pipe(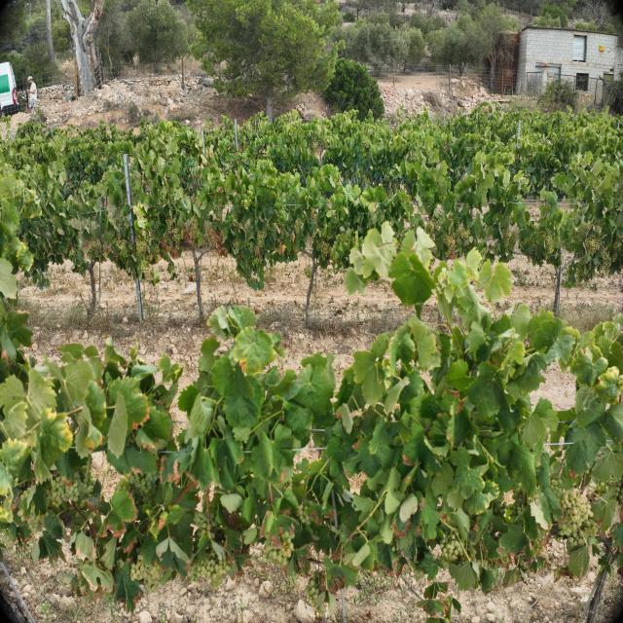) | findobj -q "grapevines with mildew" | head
[0,330,311,623]
[316,294,622,623]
